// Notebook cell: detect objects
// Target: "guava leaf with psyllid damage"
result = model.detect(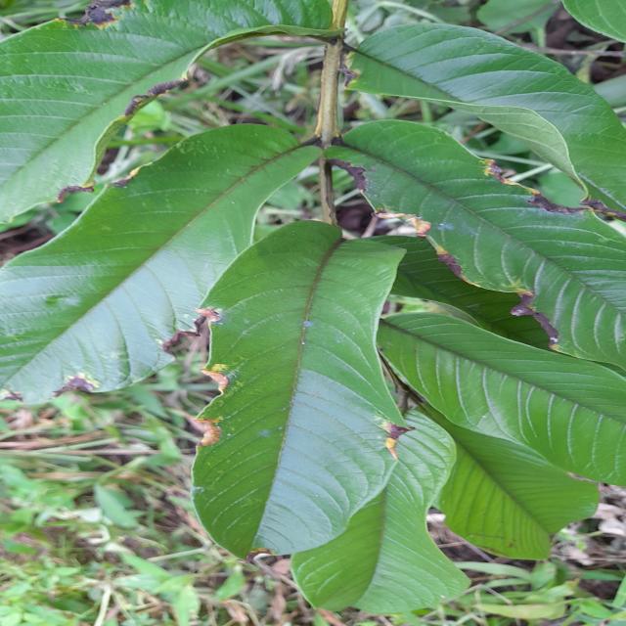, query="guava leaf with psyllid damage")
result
[184,205,427,576]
